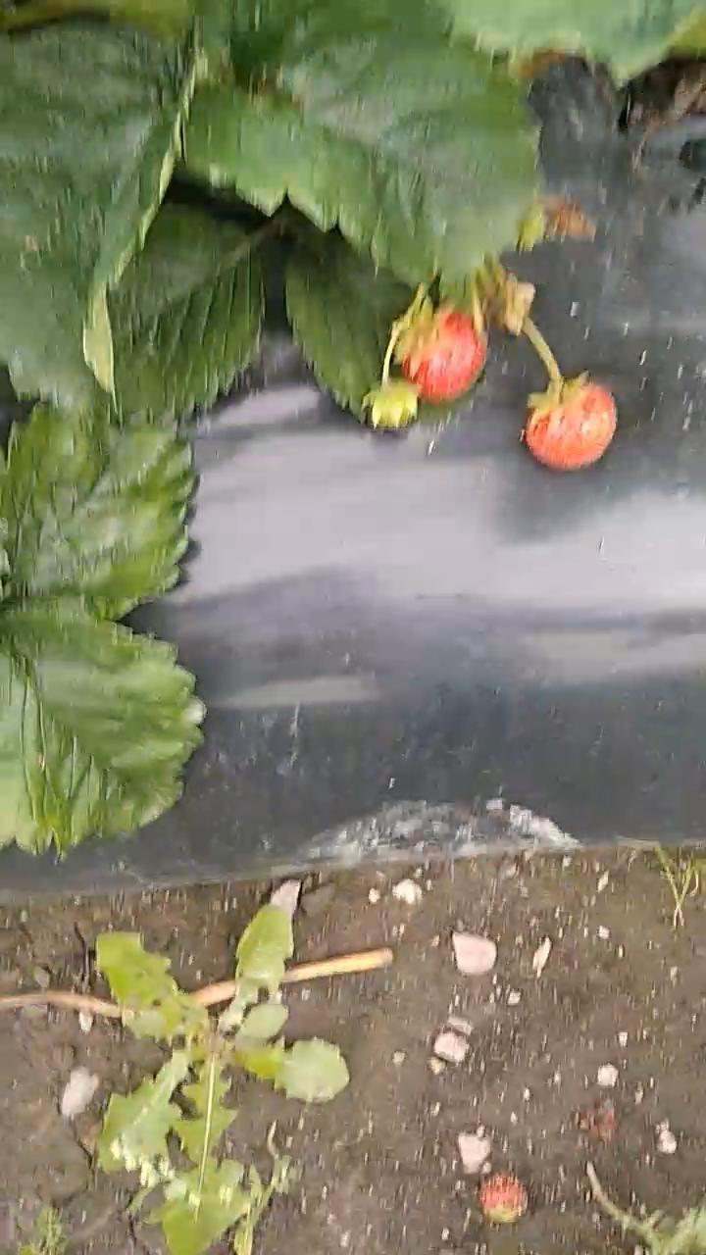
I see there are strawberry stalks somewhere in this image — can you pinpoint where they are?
[403,277,446,352]
[526,303,578,407]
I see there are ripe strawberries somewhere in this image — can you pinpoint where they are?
[397,307,493,409]
[521,384,621,472]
